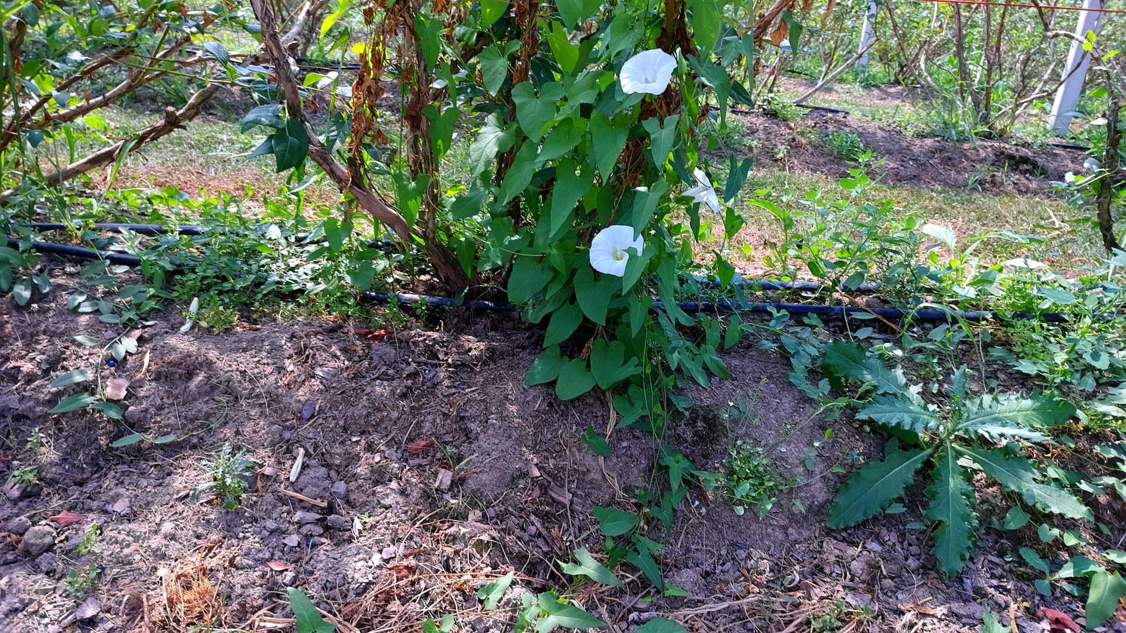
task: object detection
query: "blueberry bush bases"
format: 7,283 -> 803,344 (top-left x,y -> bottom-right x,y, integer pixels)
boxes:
0,76 -> 123,270
912,81 -> 1044,161
327,148 -> 684,375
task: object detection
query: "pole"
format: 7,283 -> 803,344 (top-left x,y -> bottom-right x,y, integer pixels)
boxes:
1047,0 -> 1100,155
